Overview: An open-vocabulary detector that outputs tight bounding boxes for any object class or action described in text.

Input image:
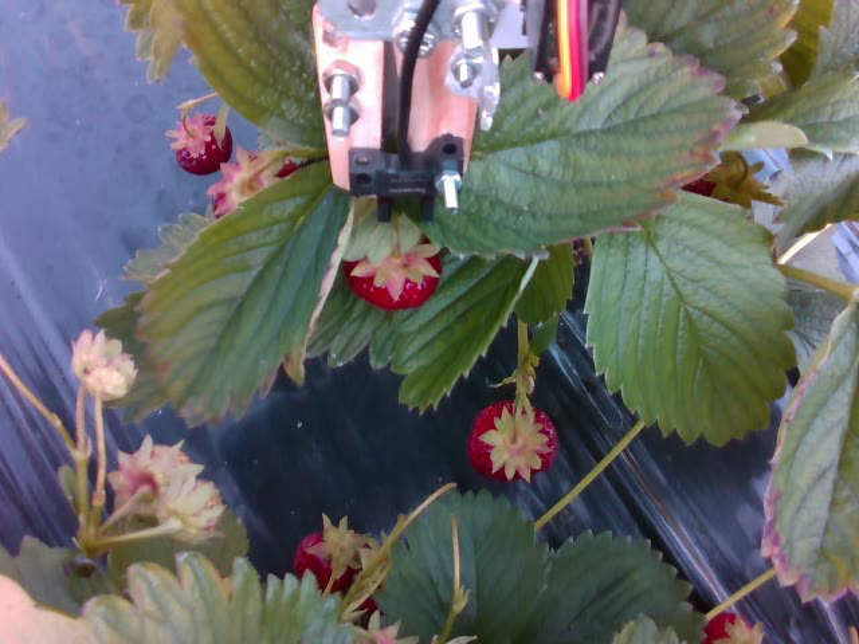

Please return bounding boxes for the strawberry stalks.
[175,98,199,142]
[309,554,352,604]
[388,213,413,276]
[502,373,531,454]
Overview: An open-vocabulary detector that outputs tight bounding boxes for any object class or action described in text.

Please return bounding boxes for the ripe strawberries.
[470,405,558,477]
[349,239,450,308]
[179,119,234,168]
[284,526,374,587]
[697,610,763,644]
